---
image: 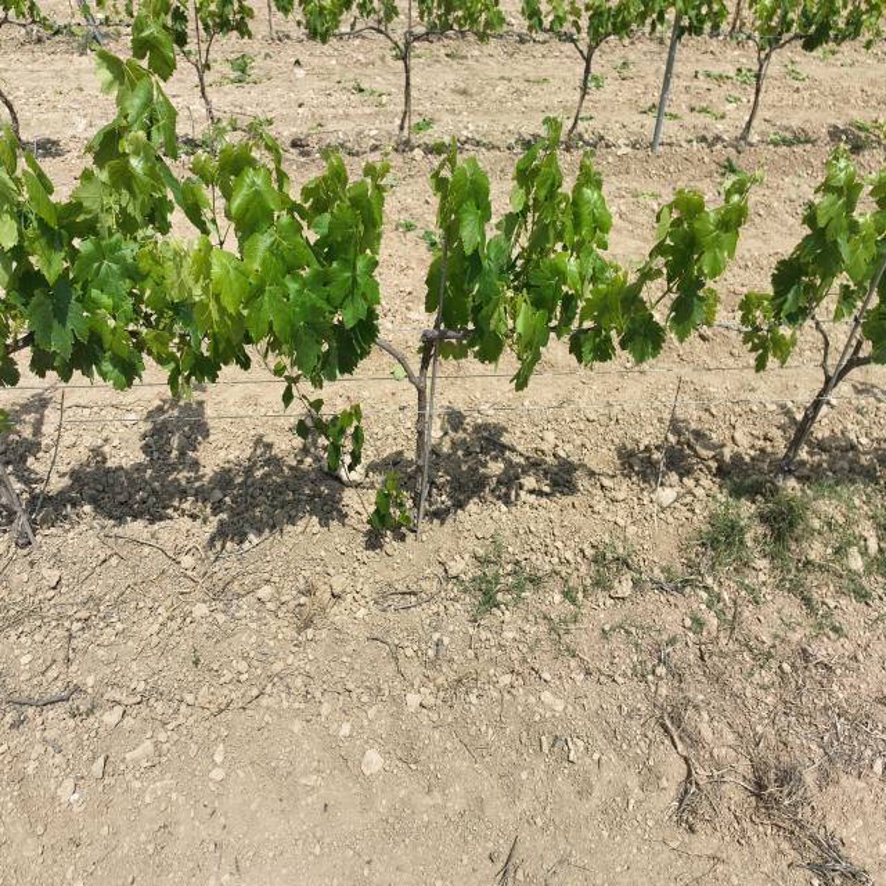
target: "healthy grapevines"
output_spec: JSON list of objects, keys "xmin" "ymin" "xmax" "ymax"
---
[
  {"xmin": 177, "ymin": 123, "xmax": 752, "ymax": 551},
  {"xmin": 736, "ymin": 140, "xmax": 886, "ymax": 519},
  {"xmin": 0, "ymin": 67, "xmax": 162, "ymax": 556}
]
